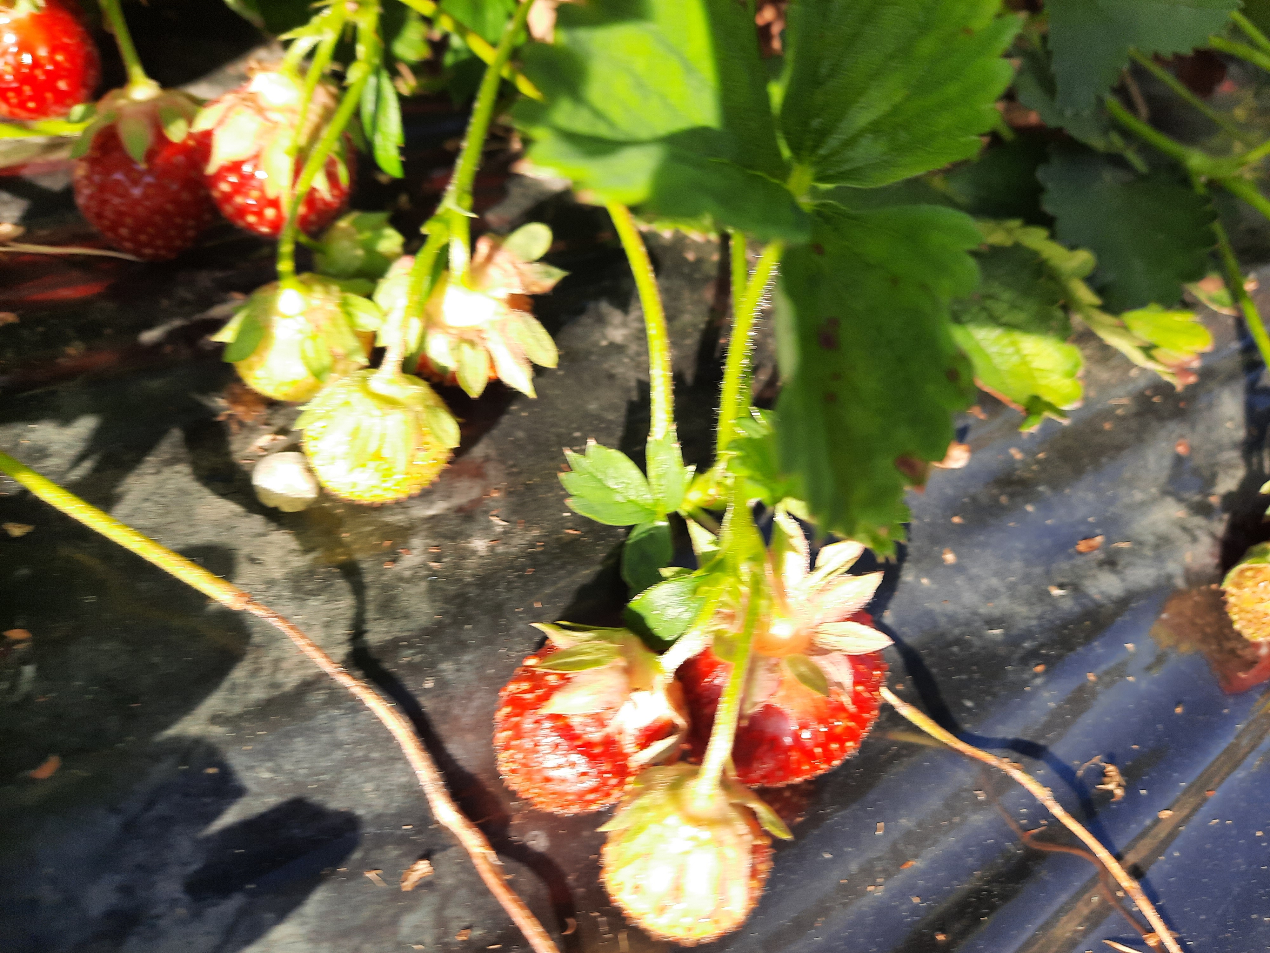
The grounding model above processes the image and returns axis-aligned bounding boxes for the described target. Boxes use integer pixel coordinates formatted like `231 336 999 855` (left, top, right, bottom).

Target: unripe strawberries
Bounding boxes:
231 294 348 390
313 373 437 499
401 252 527 386
602 784 761 938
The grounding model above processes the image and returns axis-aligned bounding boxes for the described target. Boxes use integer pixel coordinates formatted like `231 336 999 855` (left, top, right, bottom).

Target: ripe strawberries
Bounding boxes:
485 646 662 803
207 95 355 226
684 606 860 774
74 105 221 240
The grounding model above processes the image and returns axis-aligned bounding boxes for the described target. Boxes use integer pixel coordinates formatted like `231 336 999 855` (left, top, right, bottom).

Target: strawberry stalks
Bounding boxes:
448 215 493 321
639 582 725 695
270 199 311 303
100 2 168 123
716 424 785 626
681 604 752 807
